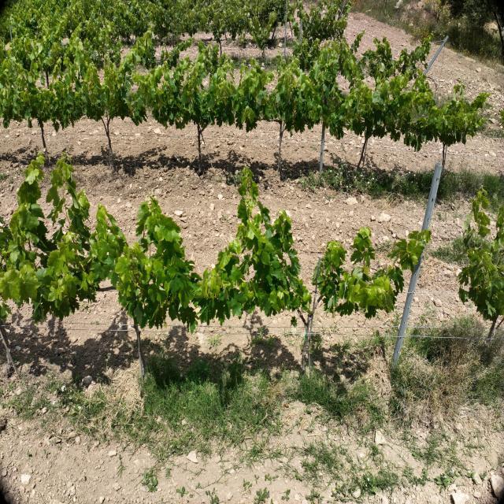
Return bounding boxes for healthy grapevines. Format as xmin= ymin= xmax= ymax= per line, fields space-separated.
xmin=0 ymin=163 xmax=47 ymax=397
xmin=437 ymin=192 xmax=504 ymax=385
xmin=214 ymin=196 xmax=435 ymax=398
xmin=37 ymin=185 xmax=221 ymax=401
